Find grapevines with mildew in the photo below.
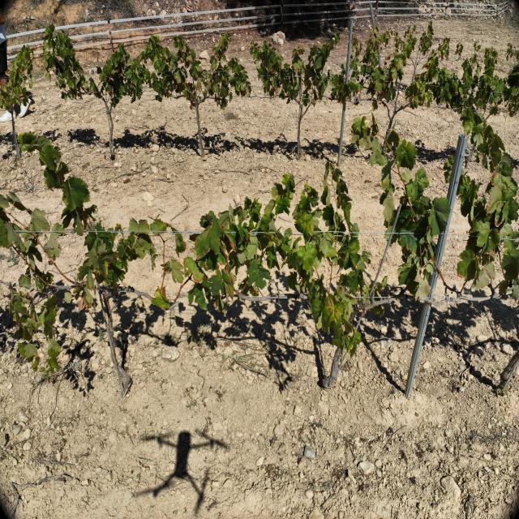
[0,137,181,412]
[182,168,451,400]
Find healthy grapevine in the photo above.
[451,137,519,401]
